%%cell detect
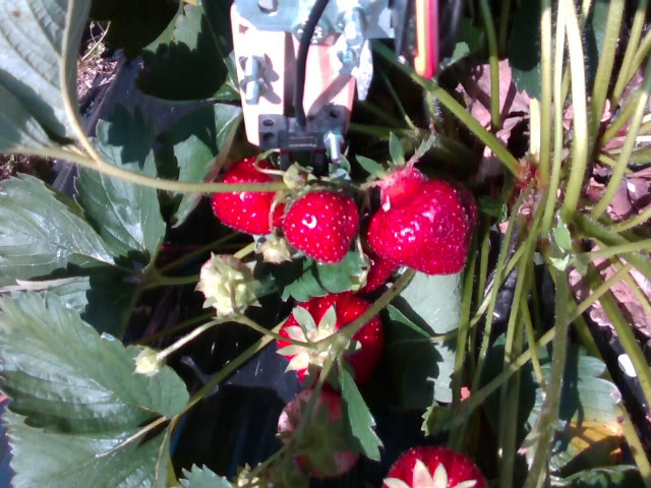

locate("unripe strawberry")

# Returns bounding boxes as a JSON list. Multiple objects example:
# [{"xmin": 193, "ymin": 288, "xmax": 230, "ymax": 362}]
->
[{"xmin": 197, "ymin": 254, "xmax": 257, "ymax": 317}]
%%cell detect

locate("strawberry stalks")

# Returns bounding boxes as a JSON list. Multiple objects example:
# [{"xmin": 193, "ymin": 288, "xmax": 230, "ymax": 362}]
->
[
  {"xmin": 290, "ymin": 388, "xmax": 324, "ymax": 445},
  {"xmin": 301, "ymin": 313, "xmax": 364, "ymax": 361}
]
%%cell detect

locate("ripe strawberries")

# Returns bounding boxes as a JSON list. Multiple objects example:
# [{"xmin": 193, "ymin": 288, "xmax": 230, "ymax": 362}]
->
[
  {"xmin": 281, "ymin": 399, "xmax": 363, "ymax": 472},
  {"xmin": 284, "ymin": 184, "xmax": 363, "ymax": 265},
  {"xmin": 214, "ymin": 160, "xmax": 304, "ymax": 235},
  {"xmin": 280, "ymin": 295, "xmax": 387, "ymax": 380},
  {"xmin": 369, "ymin": 167, "xmax": 488, "ymax": 271},
  {"xmin": 387, "ymin": 442, "xmax": 484, "ymax": 488}
]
